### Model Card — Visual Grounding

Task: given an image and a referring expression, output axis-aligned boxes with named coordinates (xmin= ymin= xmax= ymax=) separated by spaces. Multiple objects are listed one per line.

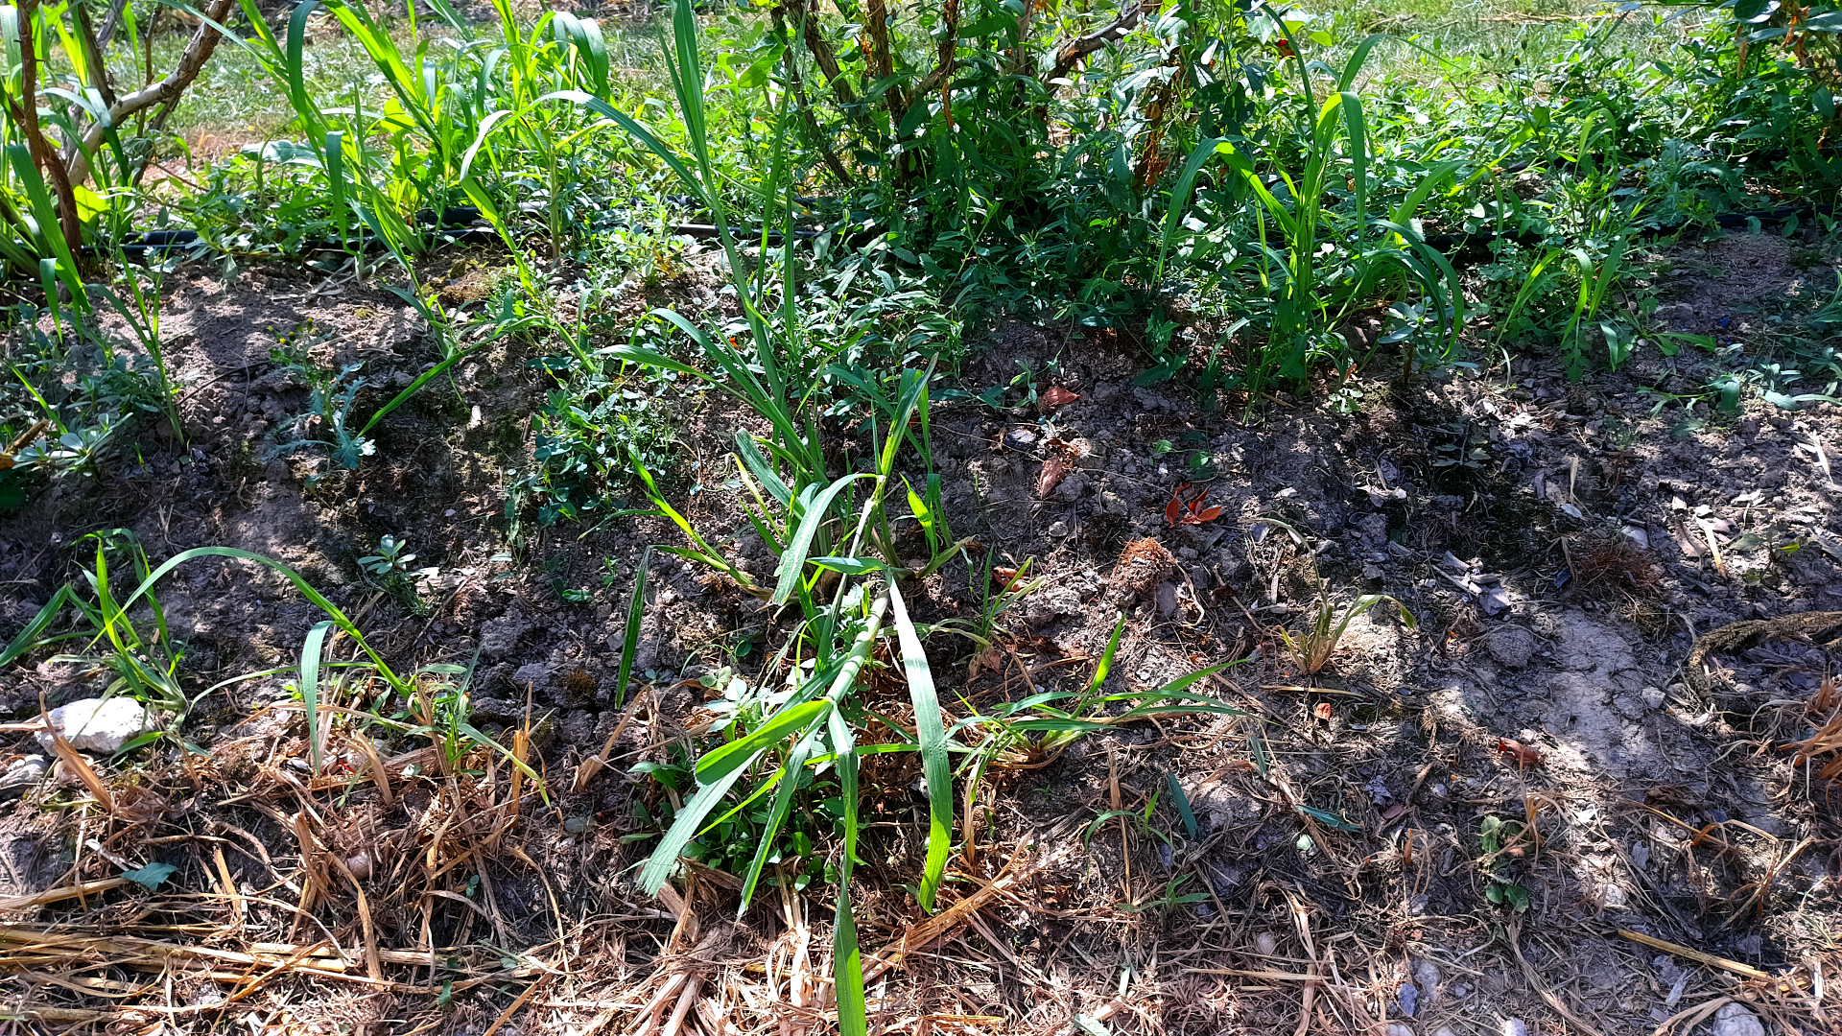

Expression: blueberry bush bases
xmin=0 ymin=72 xmax=123 ymax=398
xmin=776 ymin=71 xmax=1293 ymax=333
